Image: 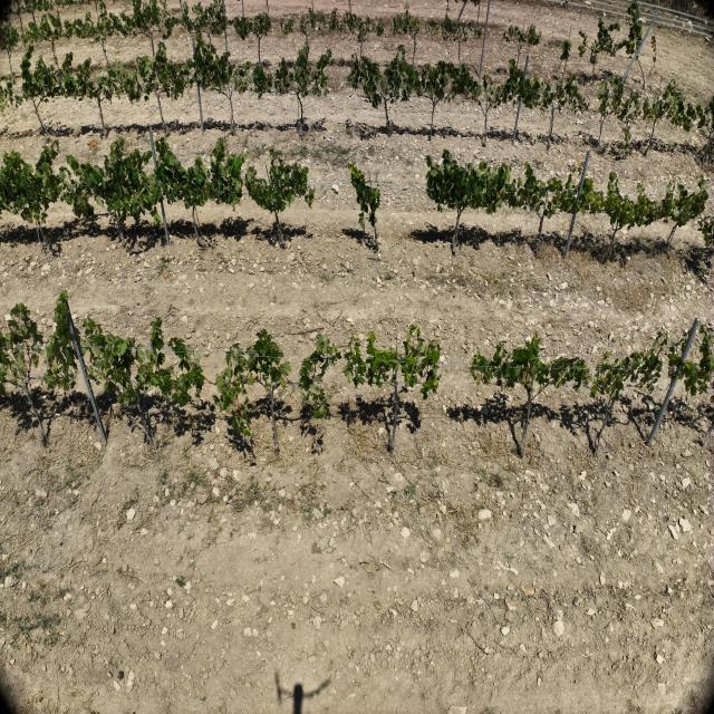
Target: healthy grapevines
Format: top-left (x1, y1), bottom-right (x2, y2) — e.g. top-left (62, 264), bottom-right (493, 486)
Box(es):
top-left (467, 328), bottom-right (591, 466)
top-left (340, 321), bottom-right (446, 462)
top-left (589, 341), bottom-right (673, 467)
top-left (0, 288), bottom-right (79, 457)
top-left (75, 312), bottom-right (211, 469)
top-left (214, 325), bottom-right (344, 467)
